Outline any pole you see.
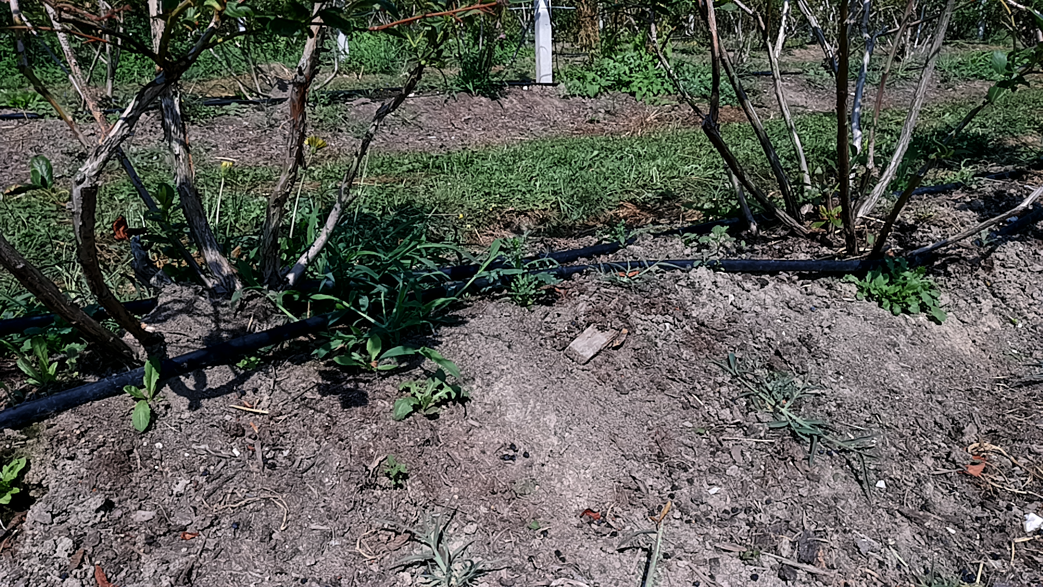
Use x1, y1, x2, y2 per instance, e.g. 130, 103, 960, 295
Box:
529, 9, 558, 83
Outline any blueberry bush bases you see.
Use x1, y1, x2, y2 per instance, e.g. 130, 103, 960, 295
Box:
450, 53, 502, 97
708, 135, 945, 286
40, 202, 343, 399
235, 62, 316, 106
